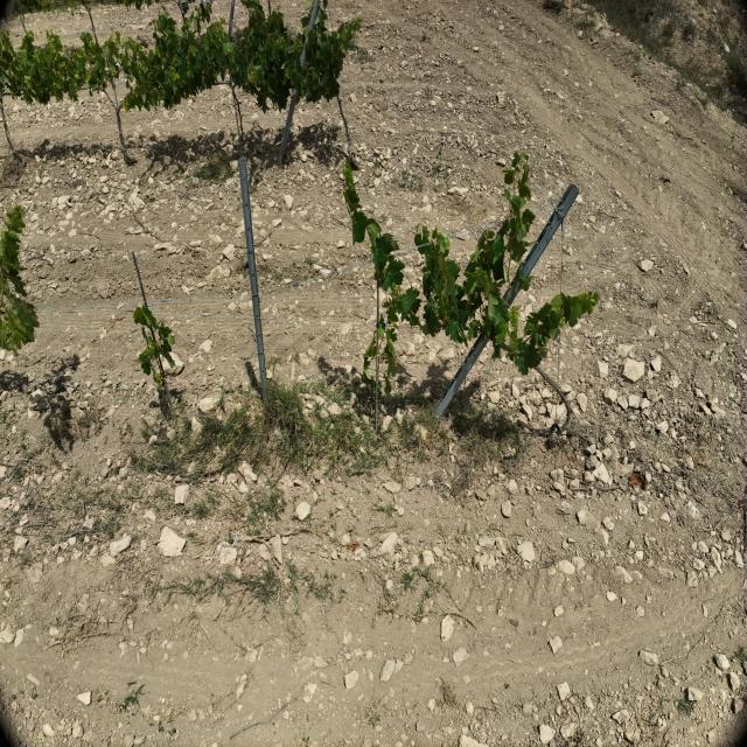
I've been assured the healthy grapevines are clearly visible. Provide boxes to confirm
[125,295,191,439]
[334,154,599,439]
